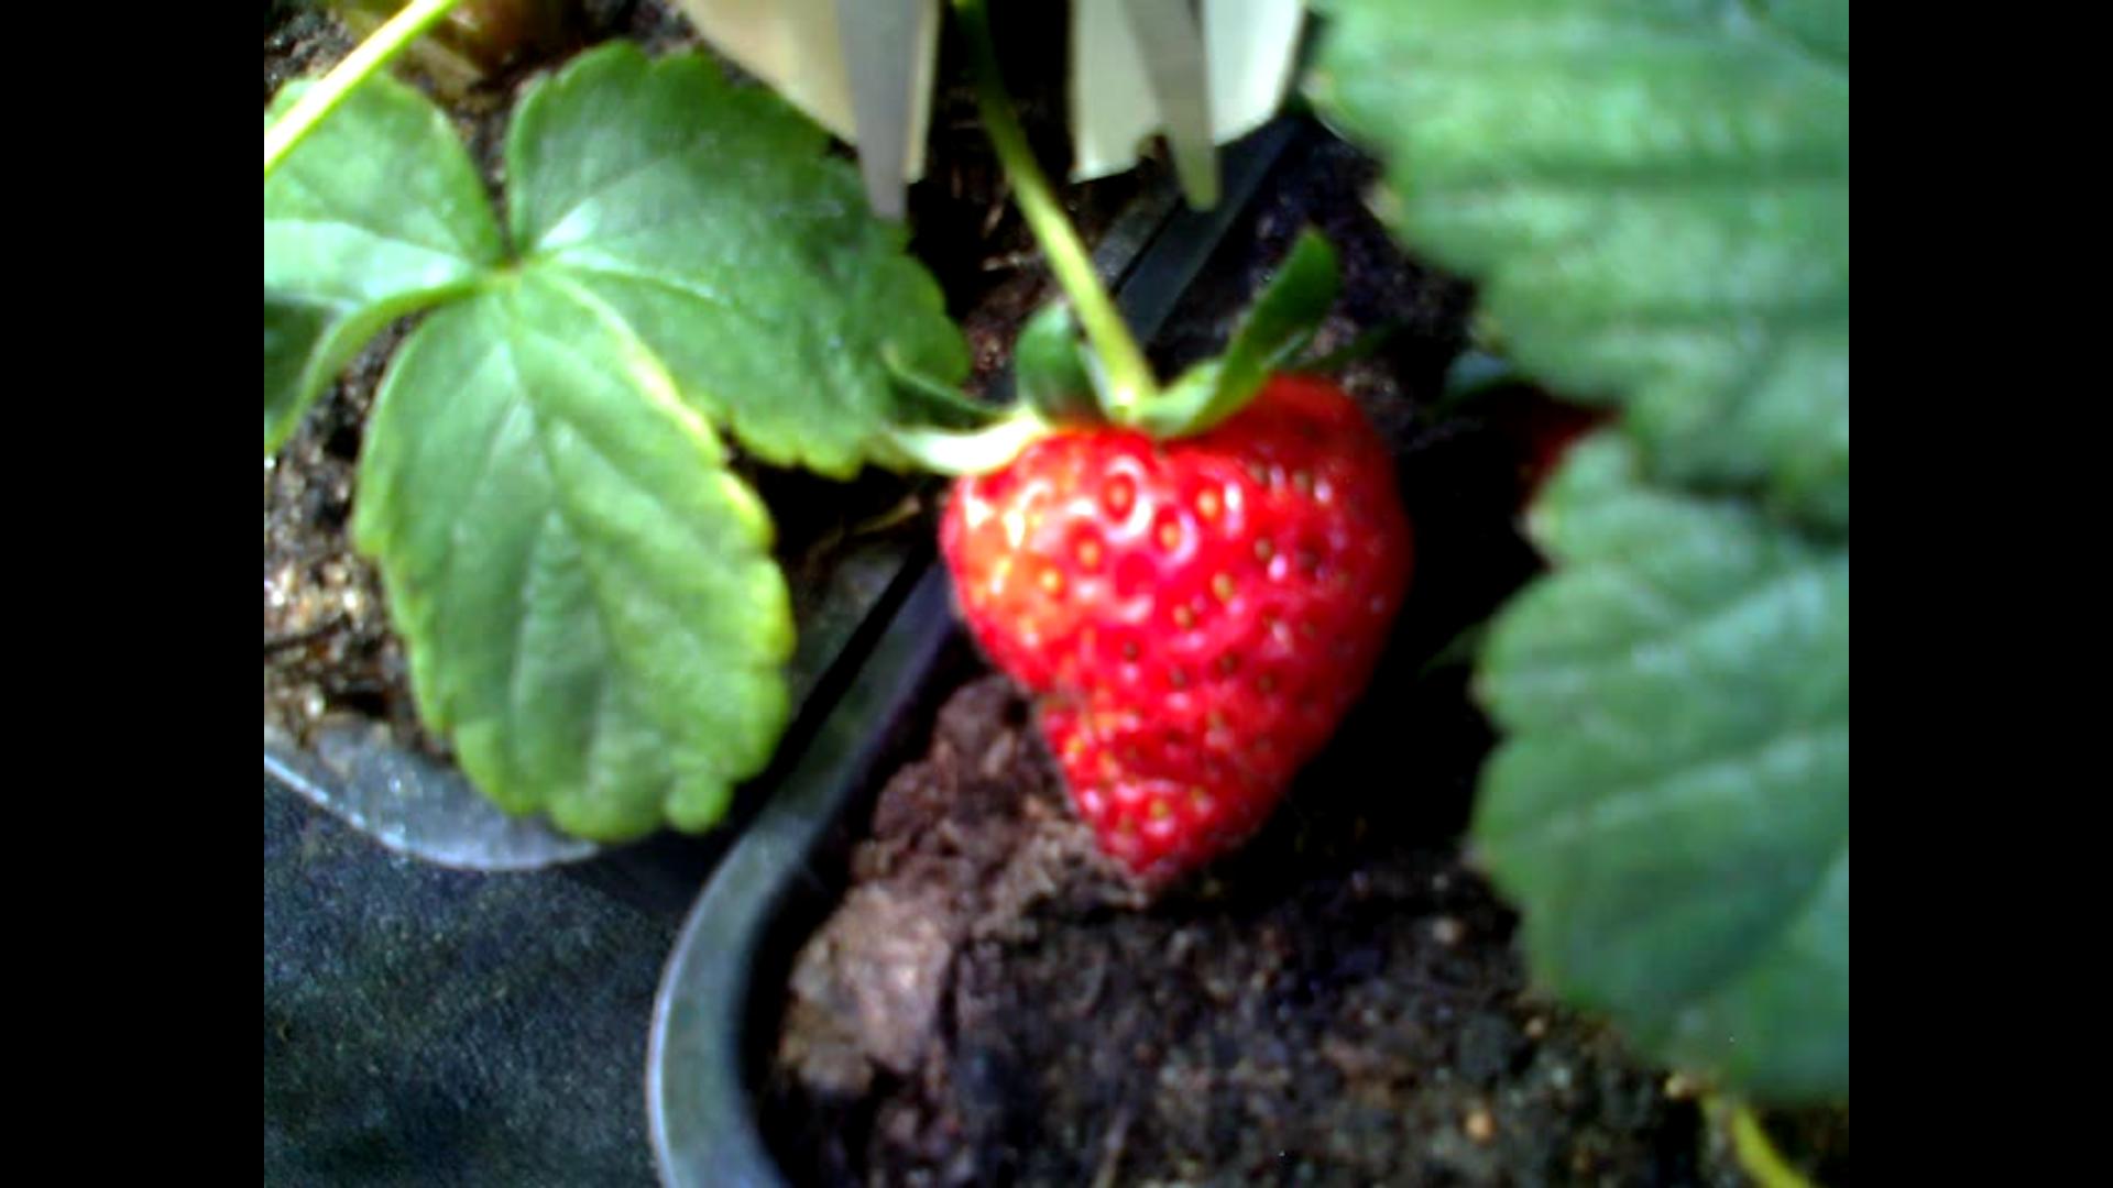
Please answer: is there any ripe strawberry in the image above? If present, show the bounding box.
[863,342,1490,913]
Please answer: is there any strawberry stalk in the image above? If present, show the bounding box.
[981,47,1203,416]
